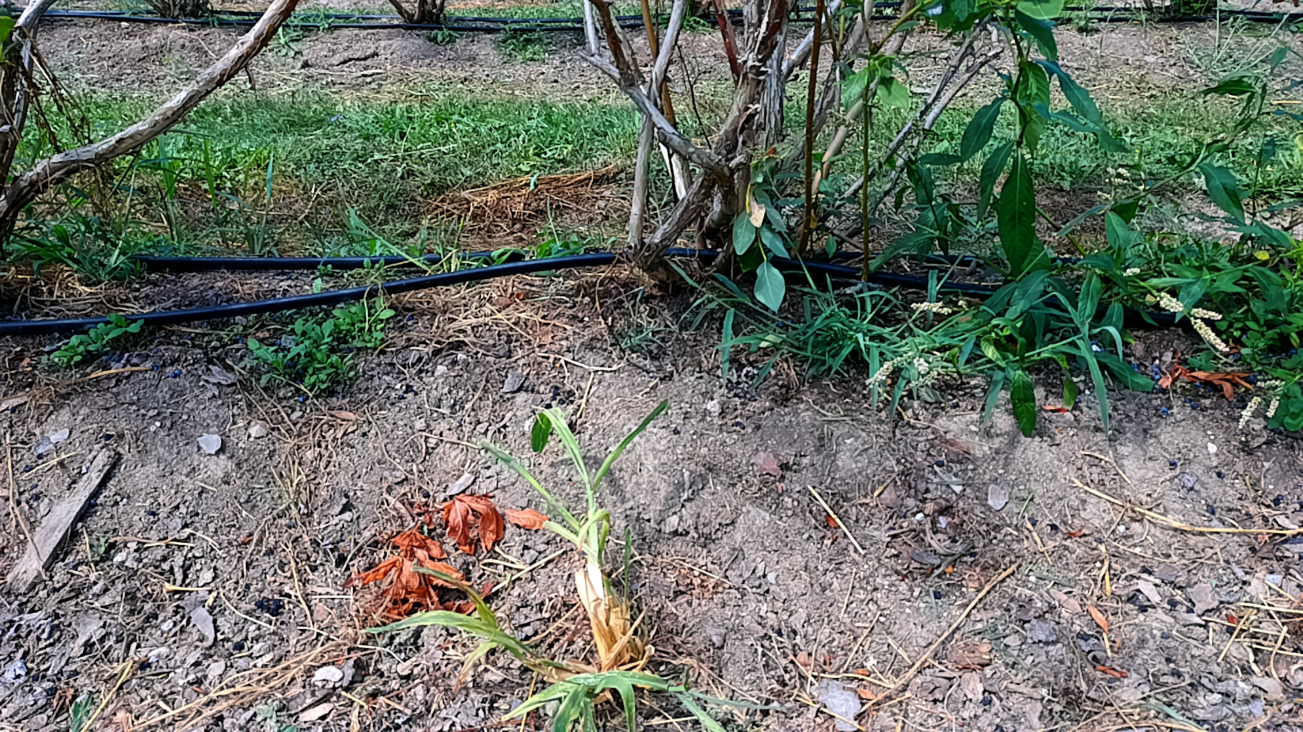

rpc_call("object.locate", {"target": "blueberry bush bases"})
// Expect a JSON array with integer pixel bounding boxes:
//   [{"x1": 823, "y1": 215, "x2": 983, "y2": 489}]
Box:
[
  {"x1": 148, "y1": 0, "x2": 226, "y2": 34},
  {"x1": 590, "y1": 89, "x2": 939, "y2": 365},
  {"x1": 0, "y1": 148, "x2": 162, "y2": 361},
  {"x1": 387, "y1": 0, "x2": 460, "y2": 39}
]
